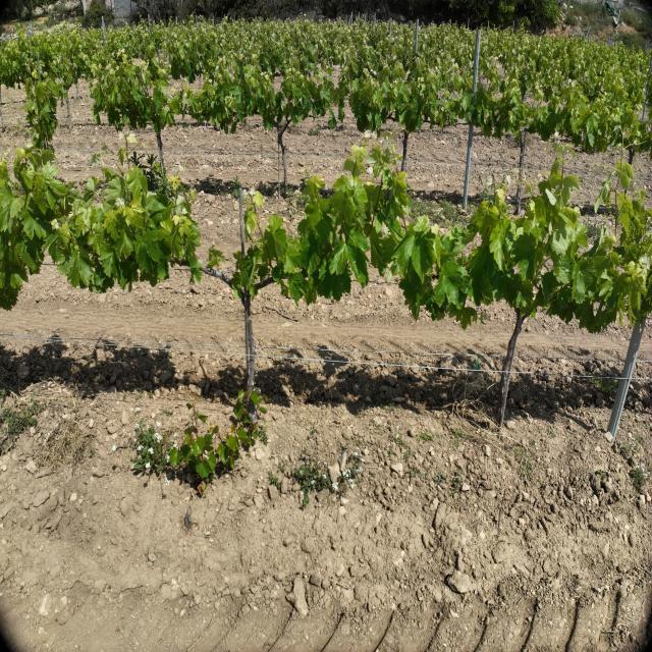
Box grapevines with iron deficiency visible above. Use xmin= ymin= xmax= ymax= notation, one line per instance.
xmin=45 ymin=140 xmax=409 ymax=418
xmin=392 ymin=156 xmax=652 ymax=432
